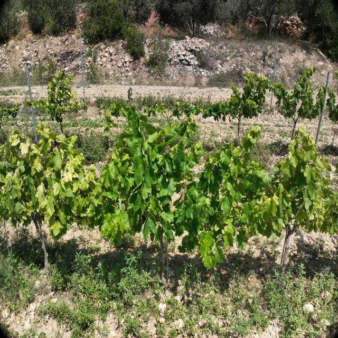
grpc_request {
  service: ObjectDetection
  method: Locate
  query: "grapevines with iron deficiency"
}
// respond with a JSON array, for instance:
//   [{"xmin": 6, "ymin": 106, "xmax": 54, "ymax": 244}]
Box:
[
  {"xmin": 215, "ymin": 129, "xmax": 338, "ymax": 301},
  {"xmin": 0, "ymin": 125, "xmax": 105, "ymax": 294}
]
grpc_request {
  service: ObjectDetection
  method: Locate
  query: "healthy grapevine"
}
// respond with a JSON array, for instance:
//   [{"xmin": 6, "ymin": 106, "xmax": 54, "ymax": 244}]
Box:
[{"xmin": 104, "ymin": 114, "xmax": 218, "ymax": 303}]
